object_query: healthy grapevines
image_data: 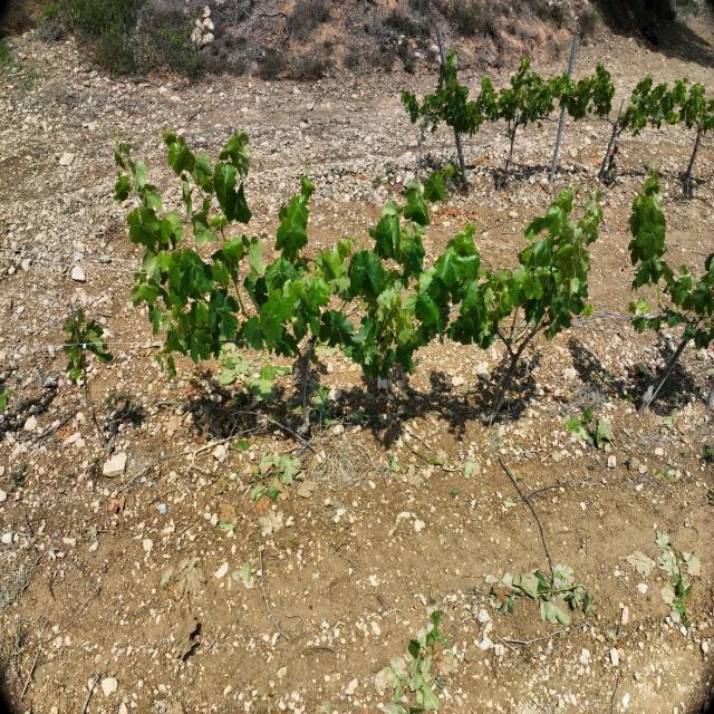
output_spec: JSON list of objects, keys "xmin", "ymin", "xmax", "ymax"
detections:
[
  {"xmin": 450, "ymin": 188, "xmax": 602, "ymax": 428},
  {"xmin": 611, "ymin": 181, "xmax": 714, "ymax": 425},
  {"xmin": 118, "ymin": 130, "xmax": 456, "ymax": 459},
  {"xmin": 48, "ymin": 290, "xmax": 119, "ymax": 465}
]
